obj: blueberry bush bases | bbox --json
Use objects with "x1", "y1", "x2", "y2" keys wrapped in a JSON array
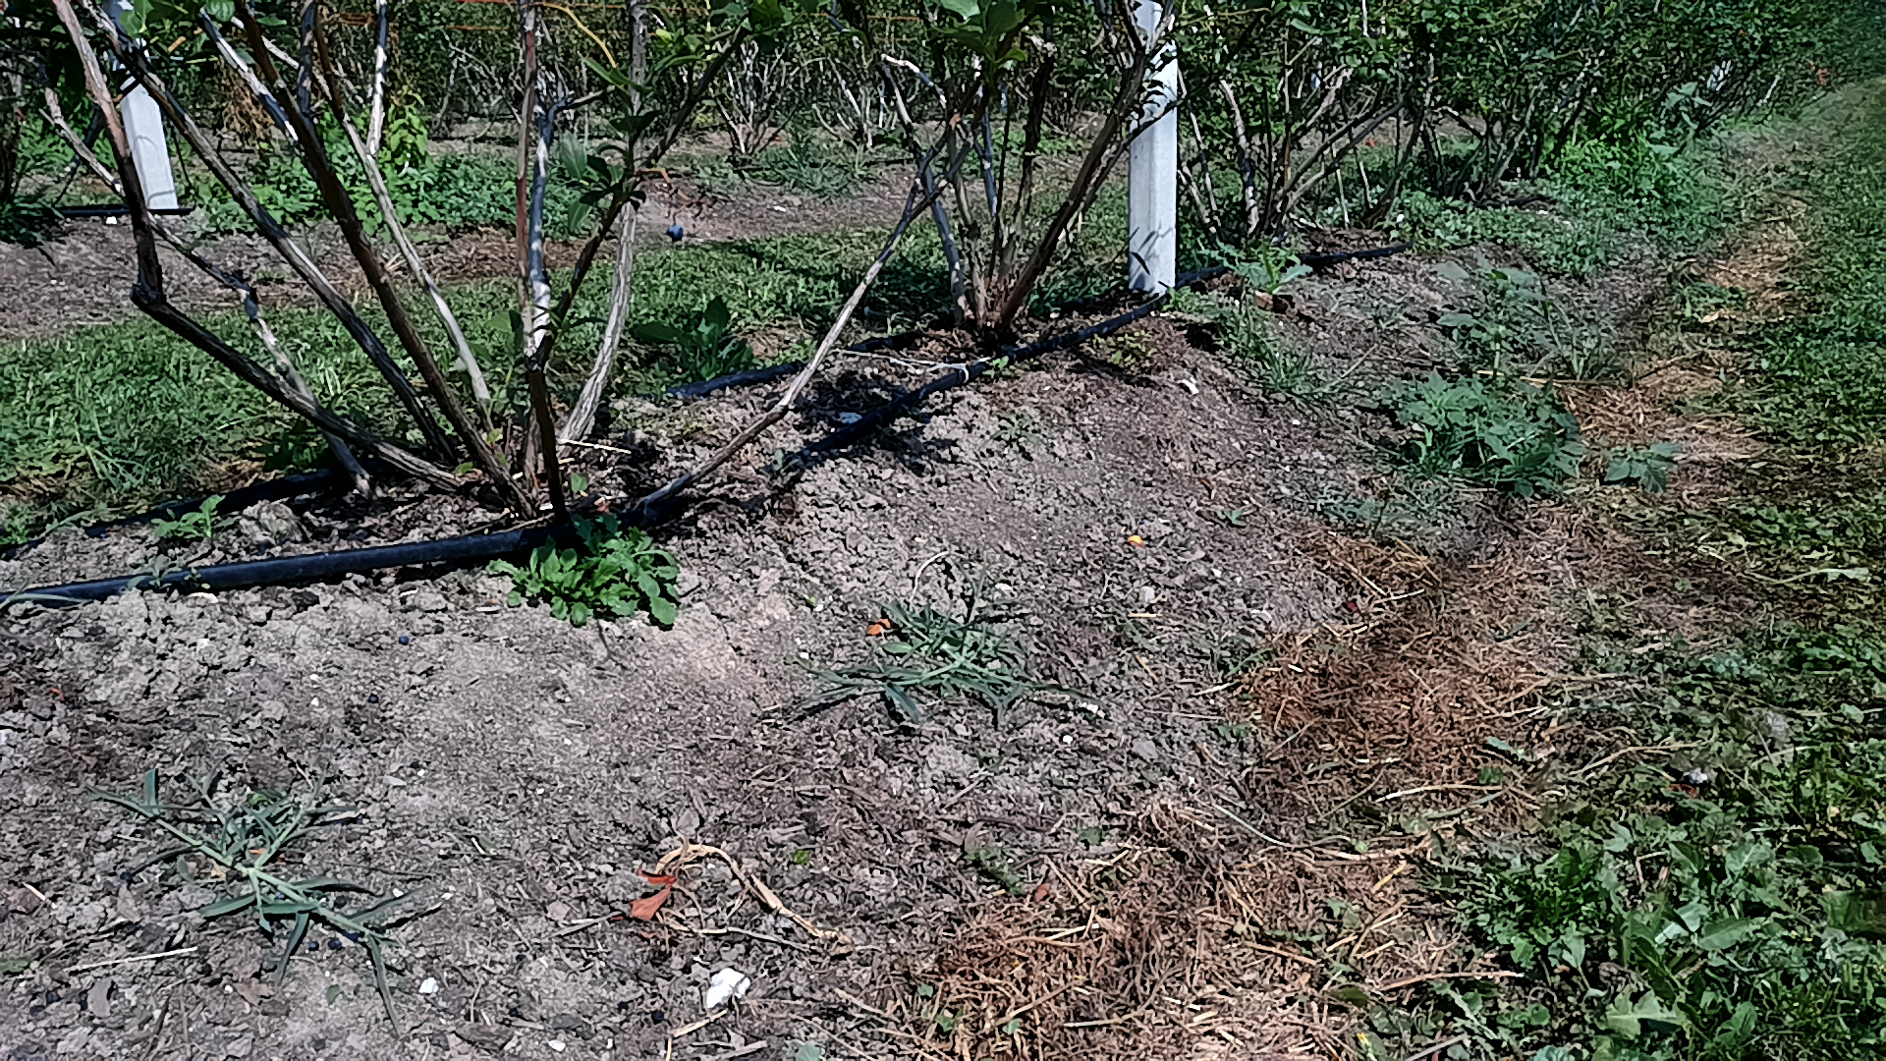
[
  {"x1": 1318, "y1": 166, "x2": 1427, "y2": 248},
  {"x1": 1191, "y1": 146, "x2": 1362, "y2": 281},
  {"x1": 905, "y1": 204, "x2": 1091, "y2": 375},
  {"x1": 710, "y1": 127, "x2": 778, "y2": 182},
  {"x1": 1427, "y1": 126, "x2": 1578, "y2": 232},
  {"x1": 234, "y1": 289, "x2": 680, "y2": 582}
]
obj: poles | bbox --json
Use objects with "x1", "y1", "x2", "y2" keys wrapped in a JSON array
[
  {"x1": 80, "y1": 5, "x2": 194, "y2": 248},
  {"x1": 1115, "y1": 19, "x2": 1190, "y2": 305}
]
